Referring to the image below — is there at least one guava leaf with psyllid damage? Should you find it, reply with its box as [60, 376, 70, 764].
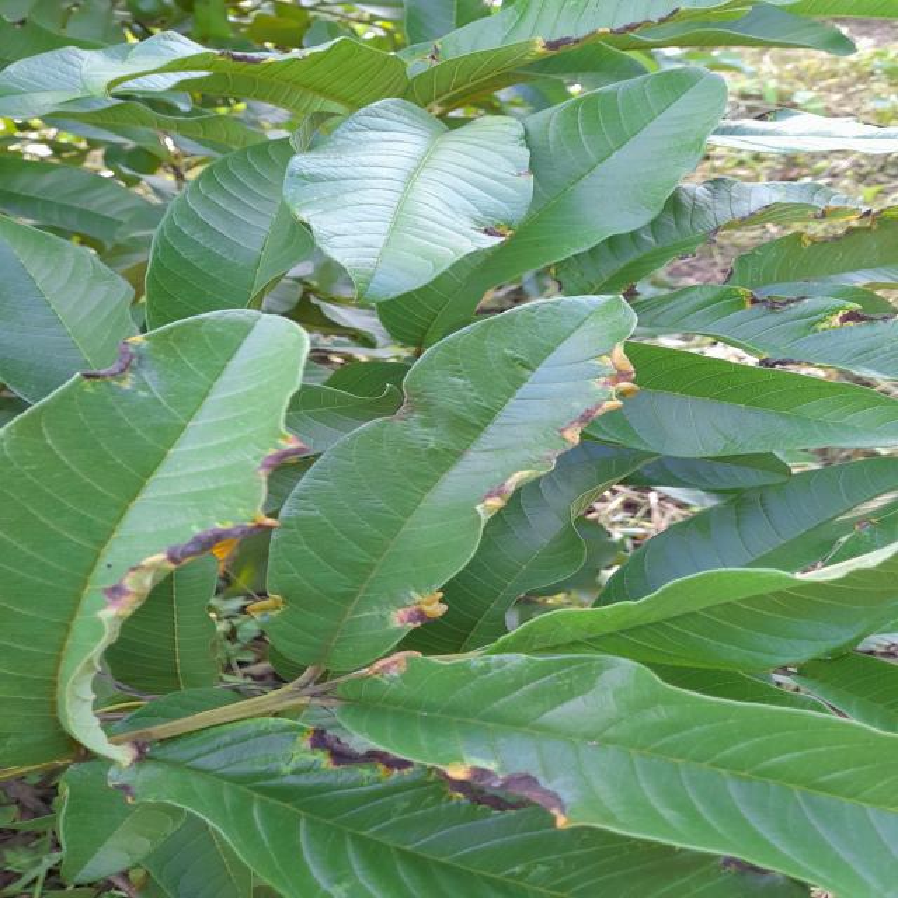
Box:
[253, 261, 651, 709]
